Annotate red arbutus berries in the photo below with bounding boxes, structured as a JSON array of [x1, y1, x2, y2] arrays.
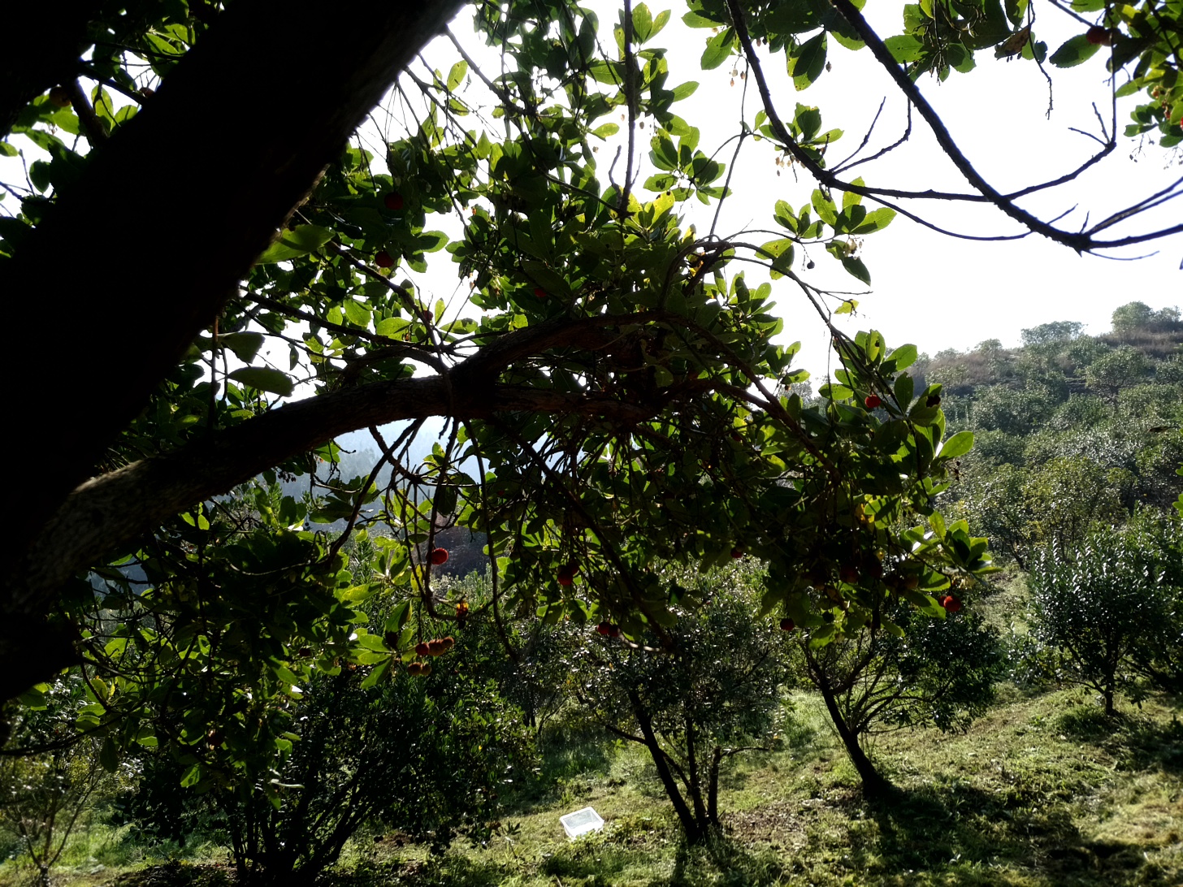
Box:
[[415, 642, 430, 656], [780, 617, 795, 631], [865, 393, 881, 408], [731, 549, 743, 559], [374, 251, 395, 268], [558, 571, 573, 586], [431, 547, 448, 565], [598, 621, 611, 634], [535, 287, 547, 298], [1086, 24, 1105, 45], [944, 595, 962, 612], [609, 627, 620, 638]]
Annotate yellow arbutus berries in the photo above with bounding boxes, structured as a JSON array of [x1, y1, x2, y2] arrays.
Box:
[[407, 661, 422, 676], [421, 663, 431, 676], [873, 547, 886, 561], [441, 637, 455, 649], [455, 600, 468, 614], [428, 637, 445, 655]]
